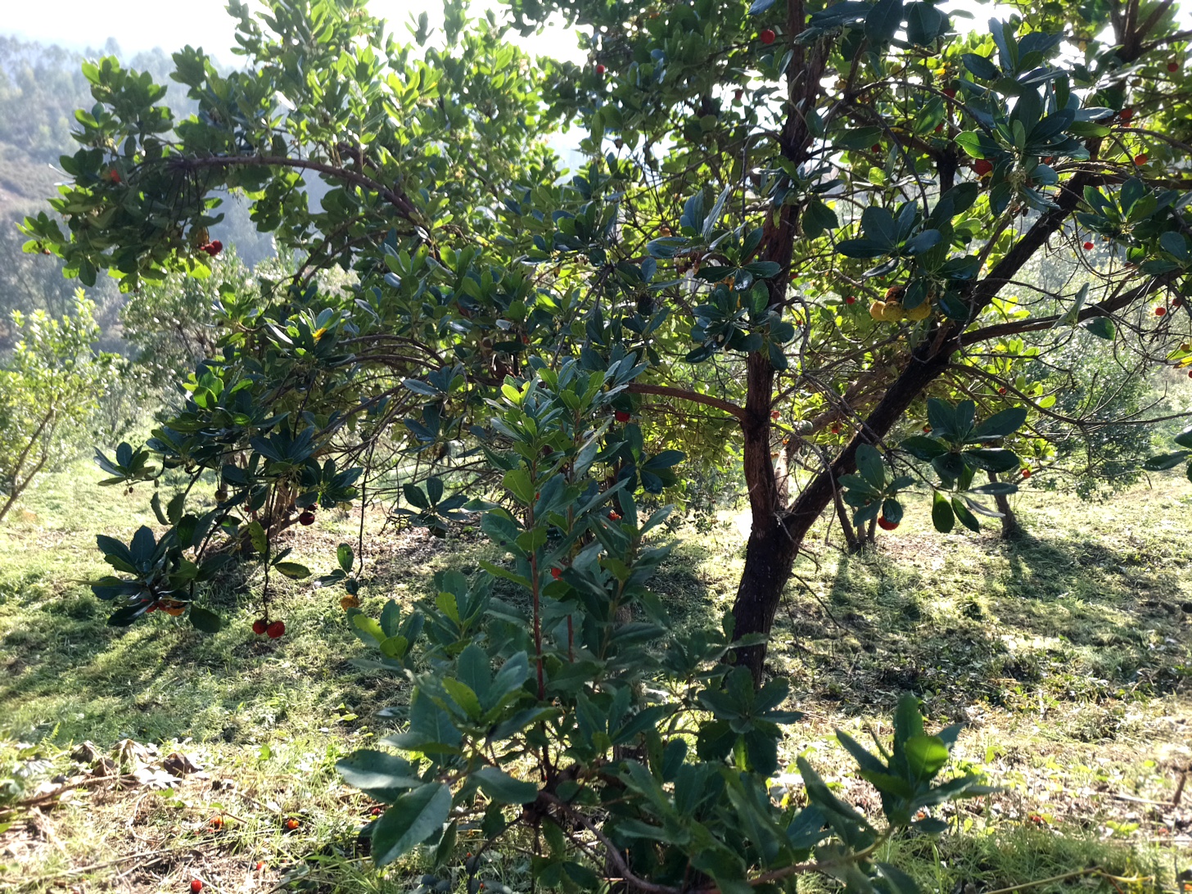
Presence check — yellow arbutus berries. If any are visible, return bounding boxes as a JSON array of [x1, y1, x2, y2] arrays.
[[901, 295, 935, 321], [869, 299, 889, 321], [341, 593, 359, 610], [169, 600, 185, 615], [882, 301, 905, 321]]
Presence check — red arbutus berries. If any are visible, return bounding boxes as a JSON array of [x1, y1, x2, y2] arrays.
[[141, 597, 156, 613], [970, 157, 993, 176], [1132, 152, 1149, 166], [921, 425, 931, 432], [212, 239, 223, 252], [614, 408, 630, 422], [882, 284, 910, 301], [846, 296, 857, 304], [941, 87, 956, 99], [1155, 306, 1165, 315], [1020, 468, 1031, 478], [878, 514, 900, 530], [830, 425, 841, 434], [1083, 242, 1095, 249], [300, 512, 317, 526], [870, 144, 881, 153], [109, 168, 123, 184], [204, 243, 216, 253], [999, 387, 1006, 395], [550, 561, 568, 584], [266, 620, 286, 638], [790, 272, 798, 280], [595, 65, 605, 74], [252, 620, 267, 634], [1172, 297, 1185, 306], [759, 28, 776, 45], [1120, 108, 1134, 119]]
